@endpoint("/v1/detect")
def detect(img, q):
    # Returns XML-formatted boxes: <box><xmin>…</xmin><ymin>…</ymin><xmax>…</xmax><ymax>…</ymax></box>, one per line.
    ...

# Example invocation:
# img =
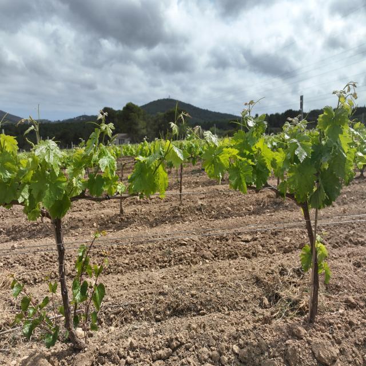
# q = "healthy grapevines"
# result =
<box><xmin>0</xmin><ymin>117</ymin><xmax>194</xmax><ymax>359</ymax></box>
<box><xmin>198</xmin><ymin>115</ymin><xmax>366</xmax><ymax>334</ymax></box>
